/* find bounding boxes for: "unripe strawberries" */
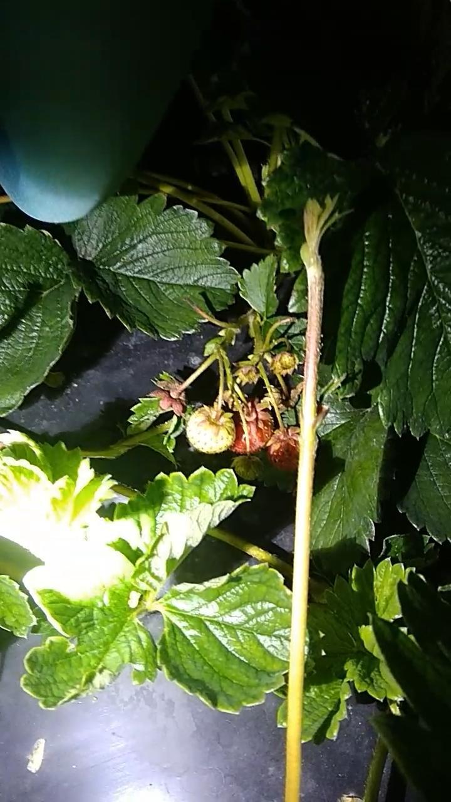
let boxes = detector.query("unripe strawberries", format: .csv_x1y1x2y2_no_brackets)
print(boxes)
233,455,265,483
186,404,236,456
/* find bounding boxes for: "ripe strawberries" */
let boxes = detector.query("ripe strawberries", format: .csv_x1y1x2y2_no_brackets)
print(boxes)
265,430,304,475
234,415,272,453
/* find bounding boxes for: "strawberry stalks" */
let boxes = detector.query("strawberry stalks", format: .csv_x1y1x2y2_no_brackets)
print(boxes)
208,368,229,421
238,387,255,440
261,372,295,443
172,359,214,389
